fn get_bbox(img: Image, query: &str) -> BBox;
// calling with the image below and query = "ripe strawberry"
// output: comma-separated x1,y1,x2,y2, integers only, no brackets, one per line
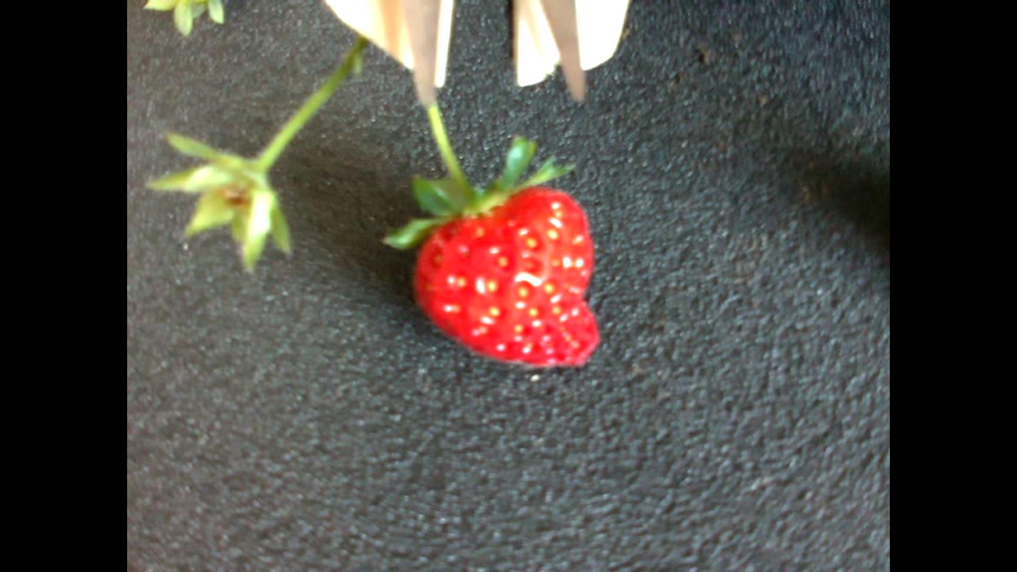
398,175,637,353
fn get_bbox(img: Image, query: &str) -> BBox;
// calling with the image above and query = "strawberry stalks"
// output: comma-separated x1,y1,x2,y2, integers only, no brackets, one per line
241,87,331,194
409,89,504,238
